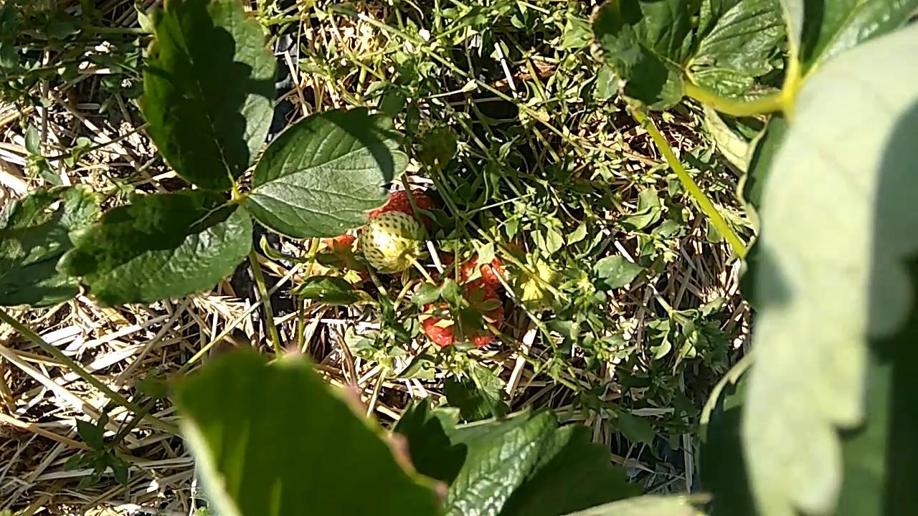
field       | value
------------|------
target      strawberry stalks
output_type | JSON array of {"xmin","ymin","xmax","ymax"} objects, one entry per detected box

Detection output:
[
  {"xmin": 399, "ymin": 252, "xmax": 438, "ymax": 283},
  {"xmin": 444, "ymin": 292, "xmax": 498, "ymax": 334}
]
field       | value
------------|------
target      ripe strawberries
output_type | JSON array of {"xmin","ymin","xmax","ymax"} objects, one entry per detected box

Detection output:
[
  {"xmin": 416, "ymin": 282, "xmax": 508, "ymax": 353},
  {"xmin": 313, "ymin": 218, "xmax": 369, "ymax": 287}
]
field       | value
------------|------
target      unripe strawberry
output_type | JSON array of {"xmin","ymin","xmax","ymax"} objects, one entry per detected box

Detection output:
[{"xmin": 359, "ymin": 208, "xmax": 426, "ymax": 273}]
